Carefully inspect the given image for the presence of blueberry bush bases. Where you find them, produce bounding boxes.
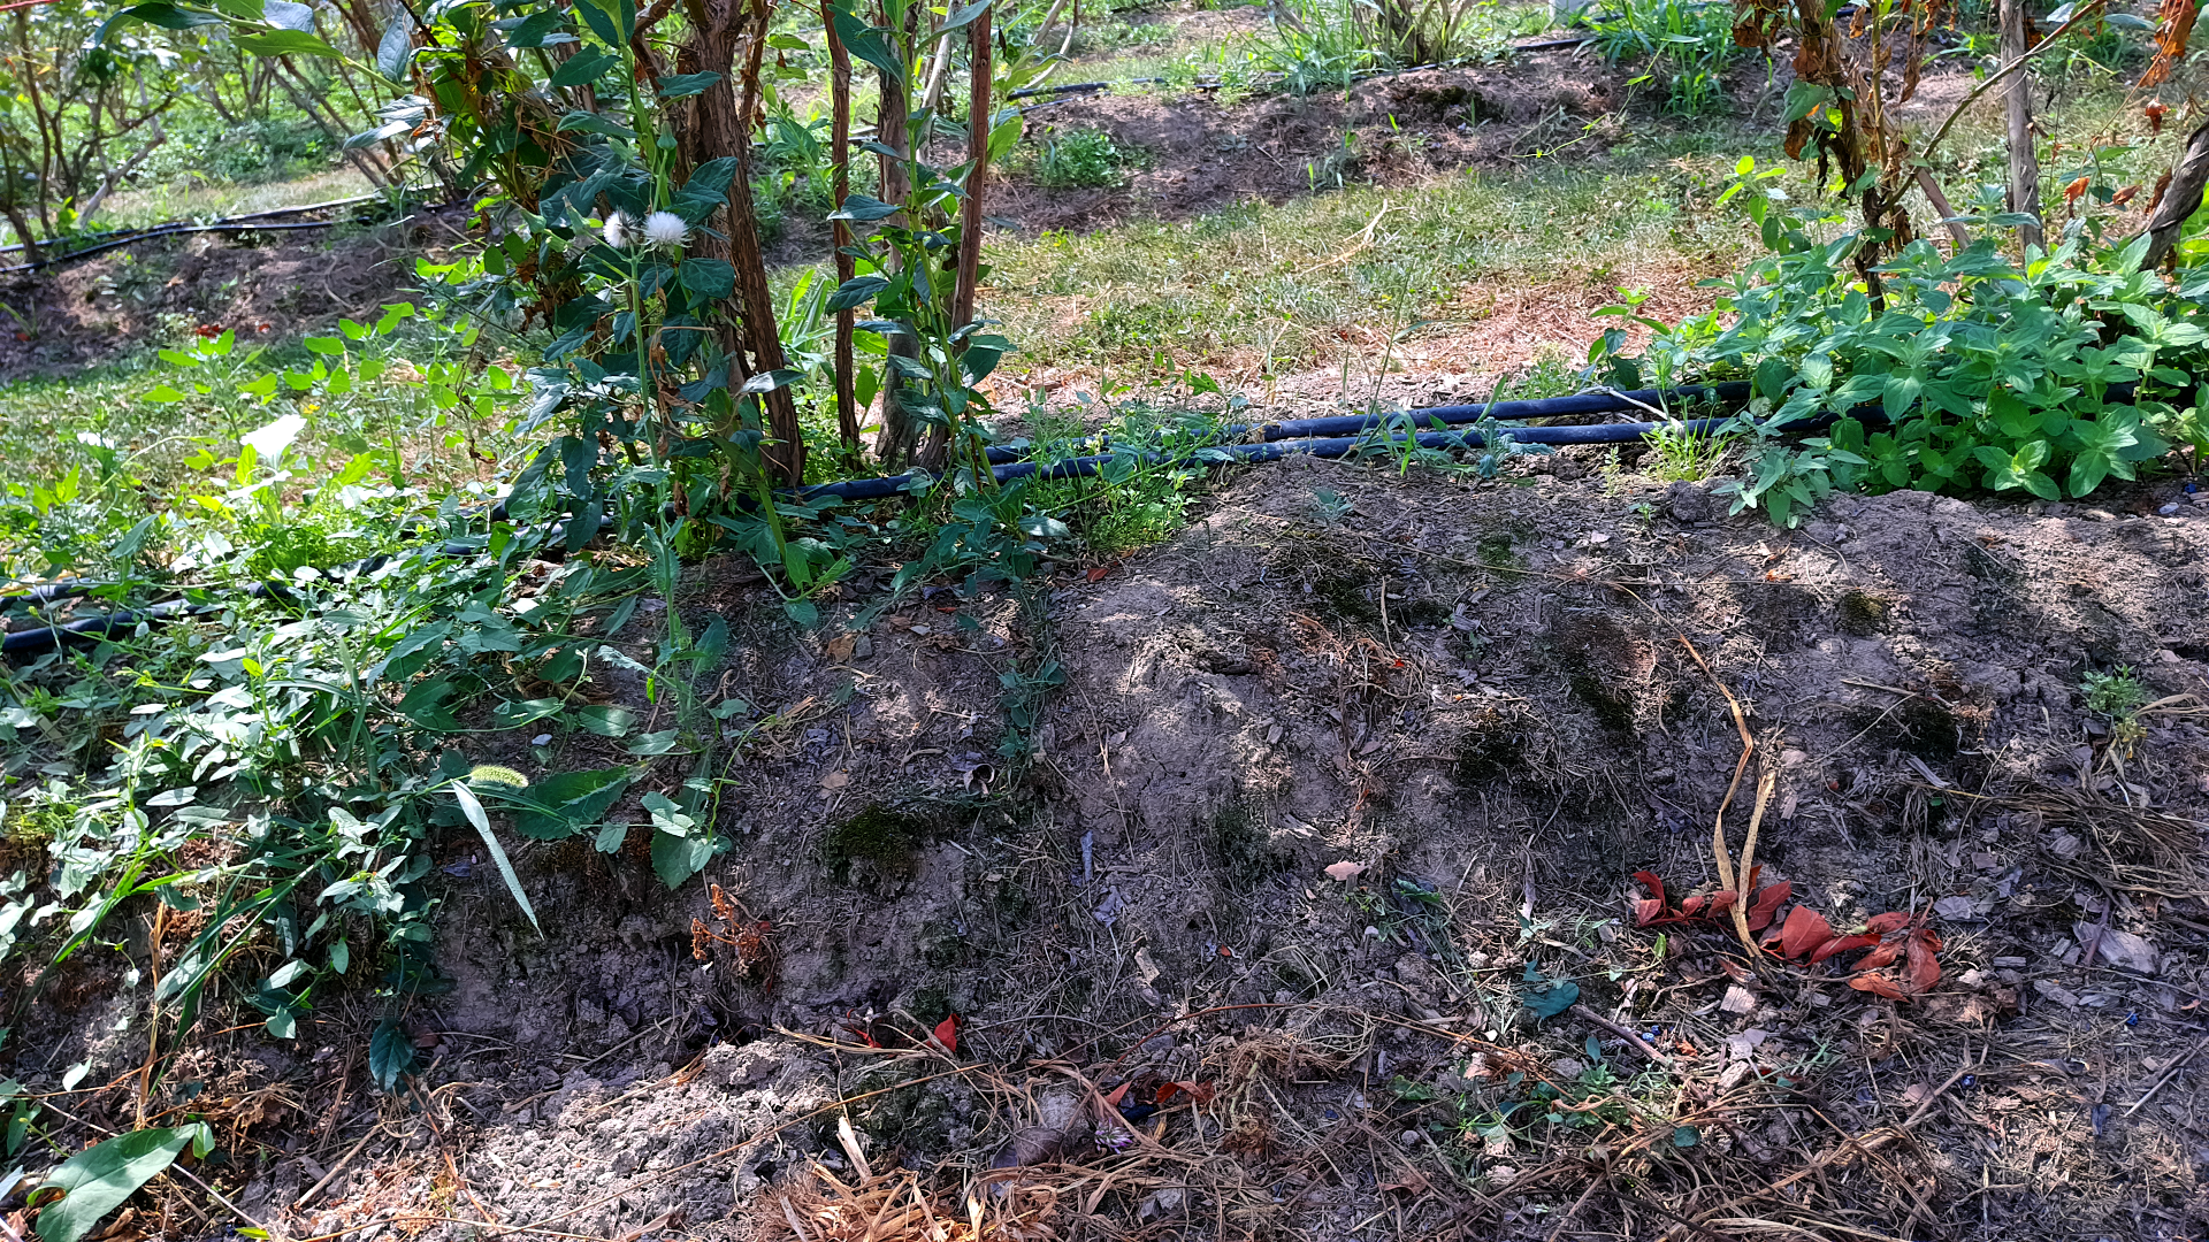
[6,152,145,292]
[335,132,494,242]
[1879,168,2209,515]
[450,158,1034,614]
[1335,0,1504,100]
